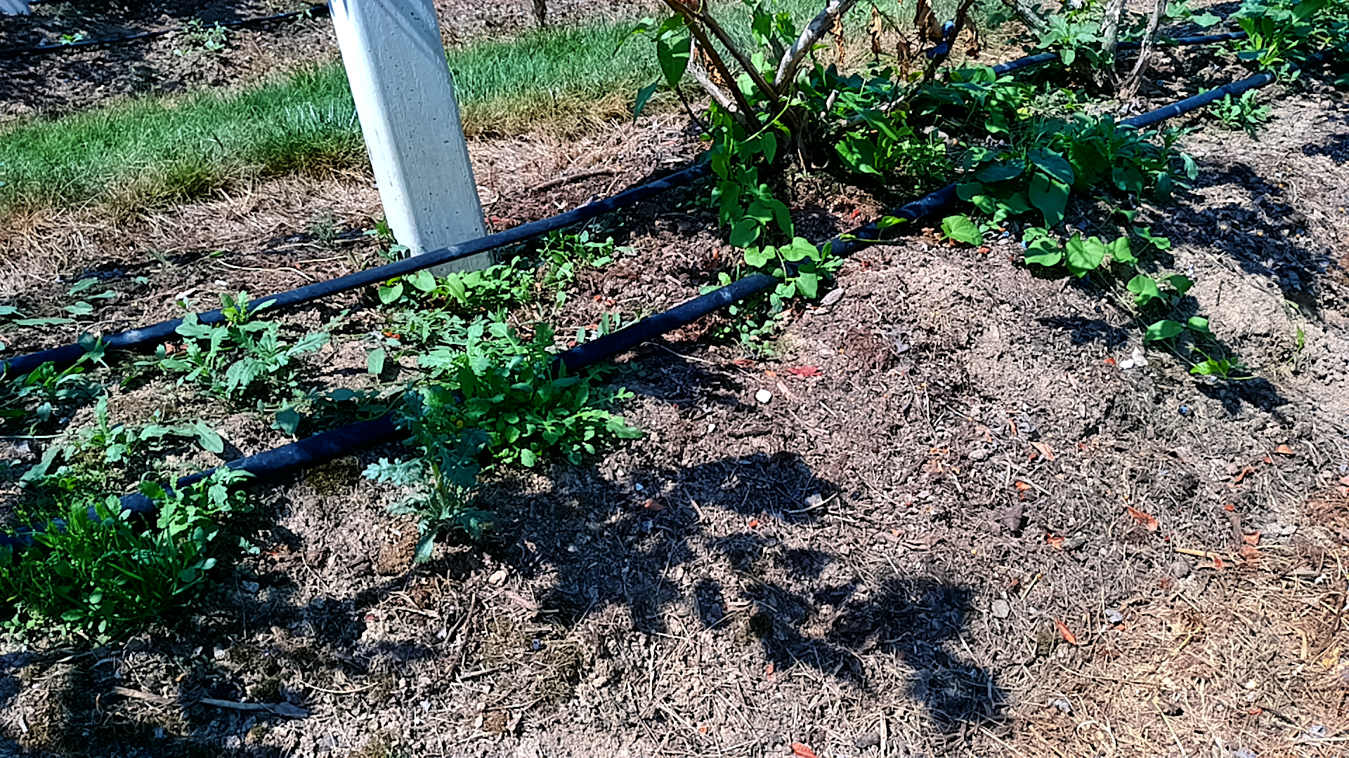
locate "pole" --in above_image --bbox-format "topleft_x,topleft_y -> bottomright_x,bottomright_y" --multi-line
315,2 -> 510,304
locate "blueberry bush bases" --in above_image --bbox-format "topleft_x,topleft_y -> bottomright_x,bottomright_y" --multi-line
665,48 -> 917,239
1006,4 -> 1186,129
